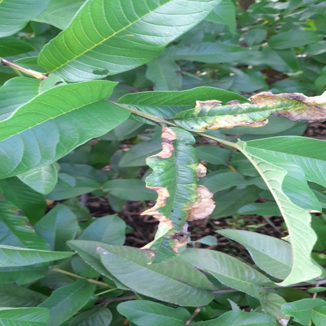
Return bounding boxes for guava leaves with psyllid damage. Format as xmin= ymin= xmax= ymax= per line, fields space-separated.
xmin=144 ymin=84 xmax=326 ymax=139
xmin=141 ymin=121 xmax=226 ymax=265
